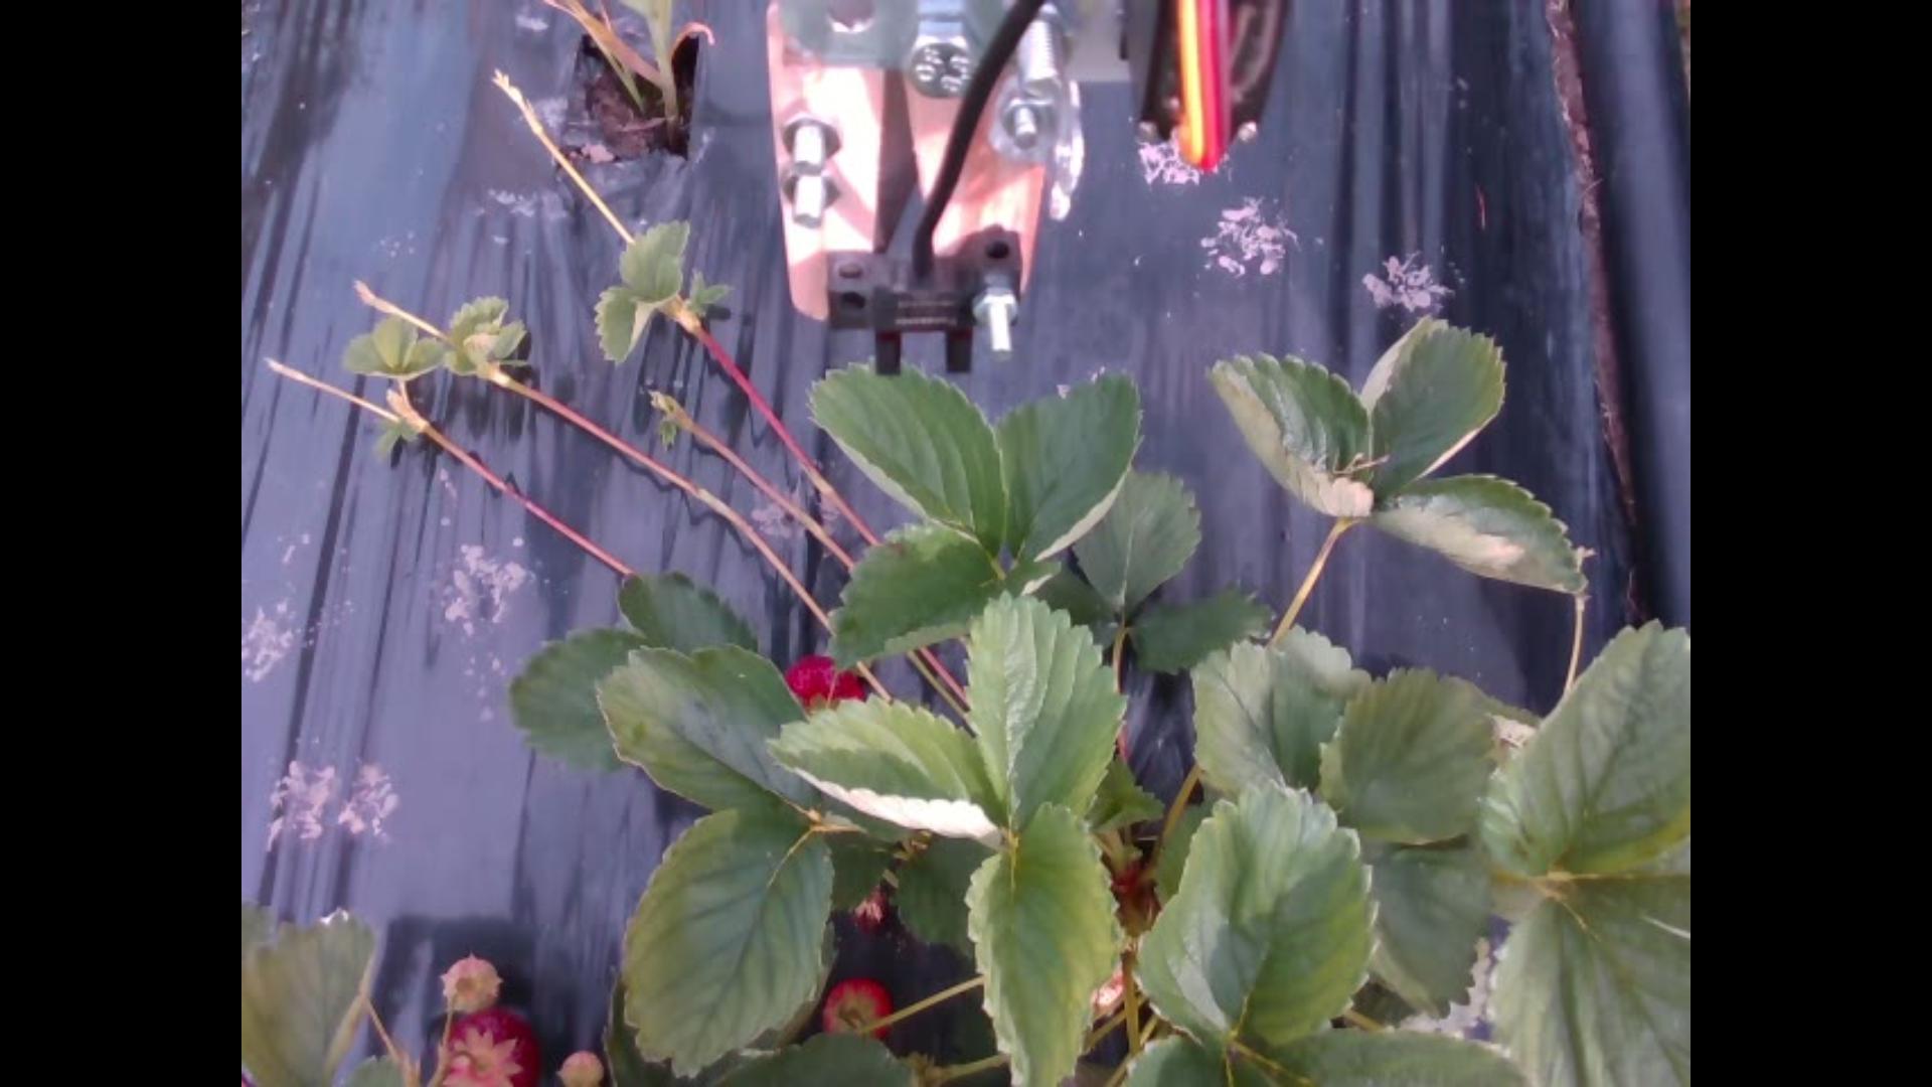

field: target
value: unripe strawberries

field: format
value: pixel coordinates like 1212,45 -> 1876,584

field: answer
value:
844,995 -> 934,1037
430,949 -> 505,1007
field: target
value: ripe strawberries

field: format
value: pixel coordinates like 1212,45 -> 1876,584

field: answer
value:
431,1014 -> 548,1087
823,968 -> 894,1040
783,656 -> 873,716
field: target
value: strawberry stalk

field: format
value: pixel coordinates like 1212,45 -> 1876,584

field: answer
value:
422,973 -> 469,1054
